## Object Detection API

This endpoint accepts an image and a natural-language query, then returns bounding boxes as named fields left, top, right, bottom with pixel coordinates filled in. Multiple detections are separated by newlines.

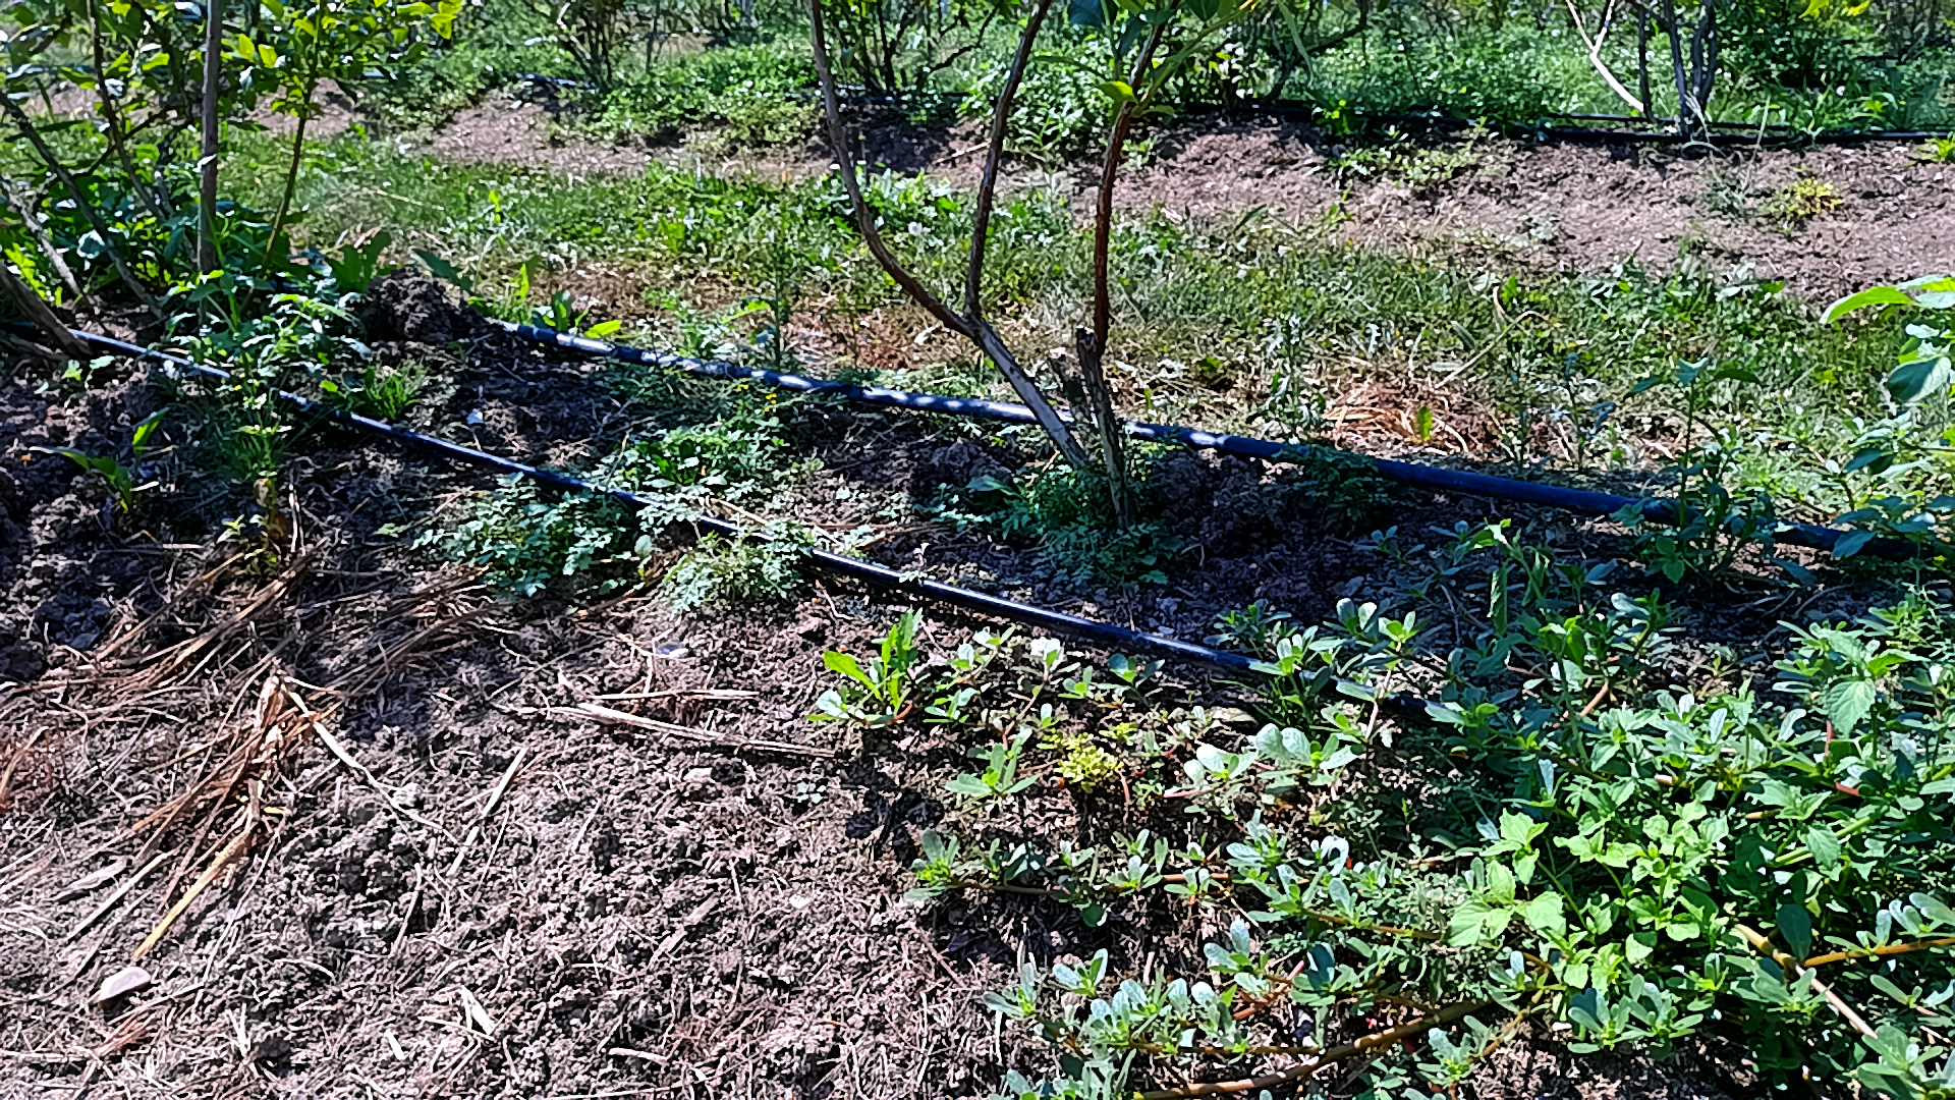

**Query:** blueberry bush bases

left=875, top=284, right=1220, bottom=555
left=3, top=74, right=359, bottom=462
